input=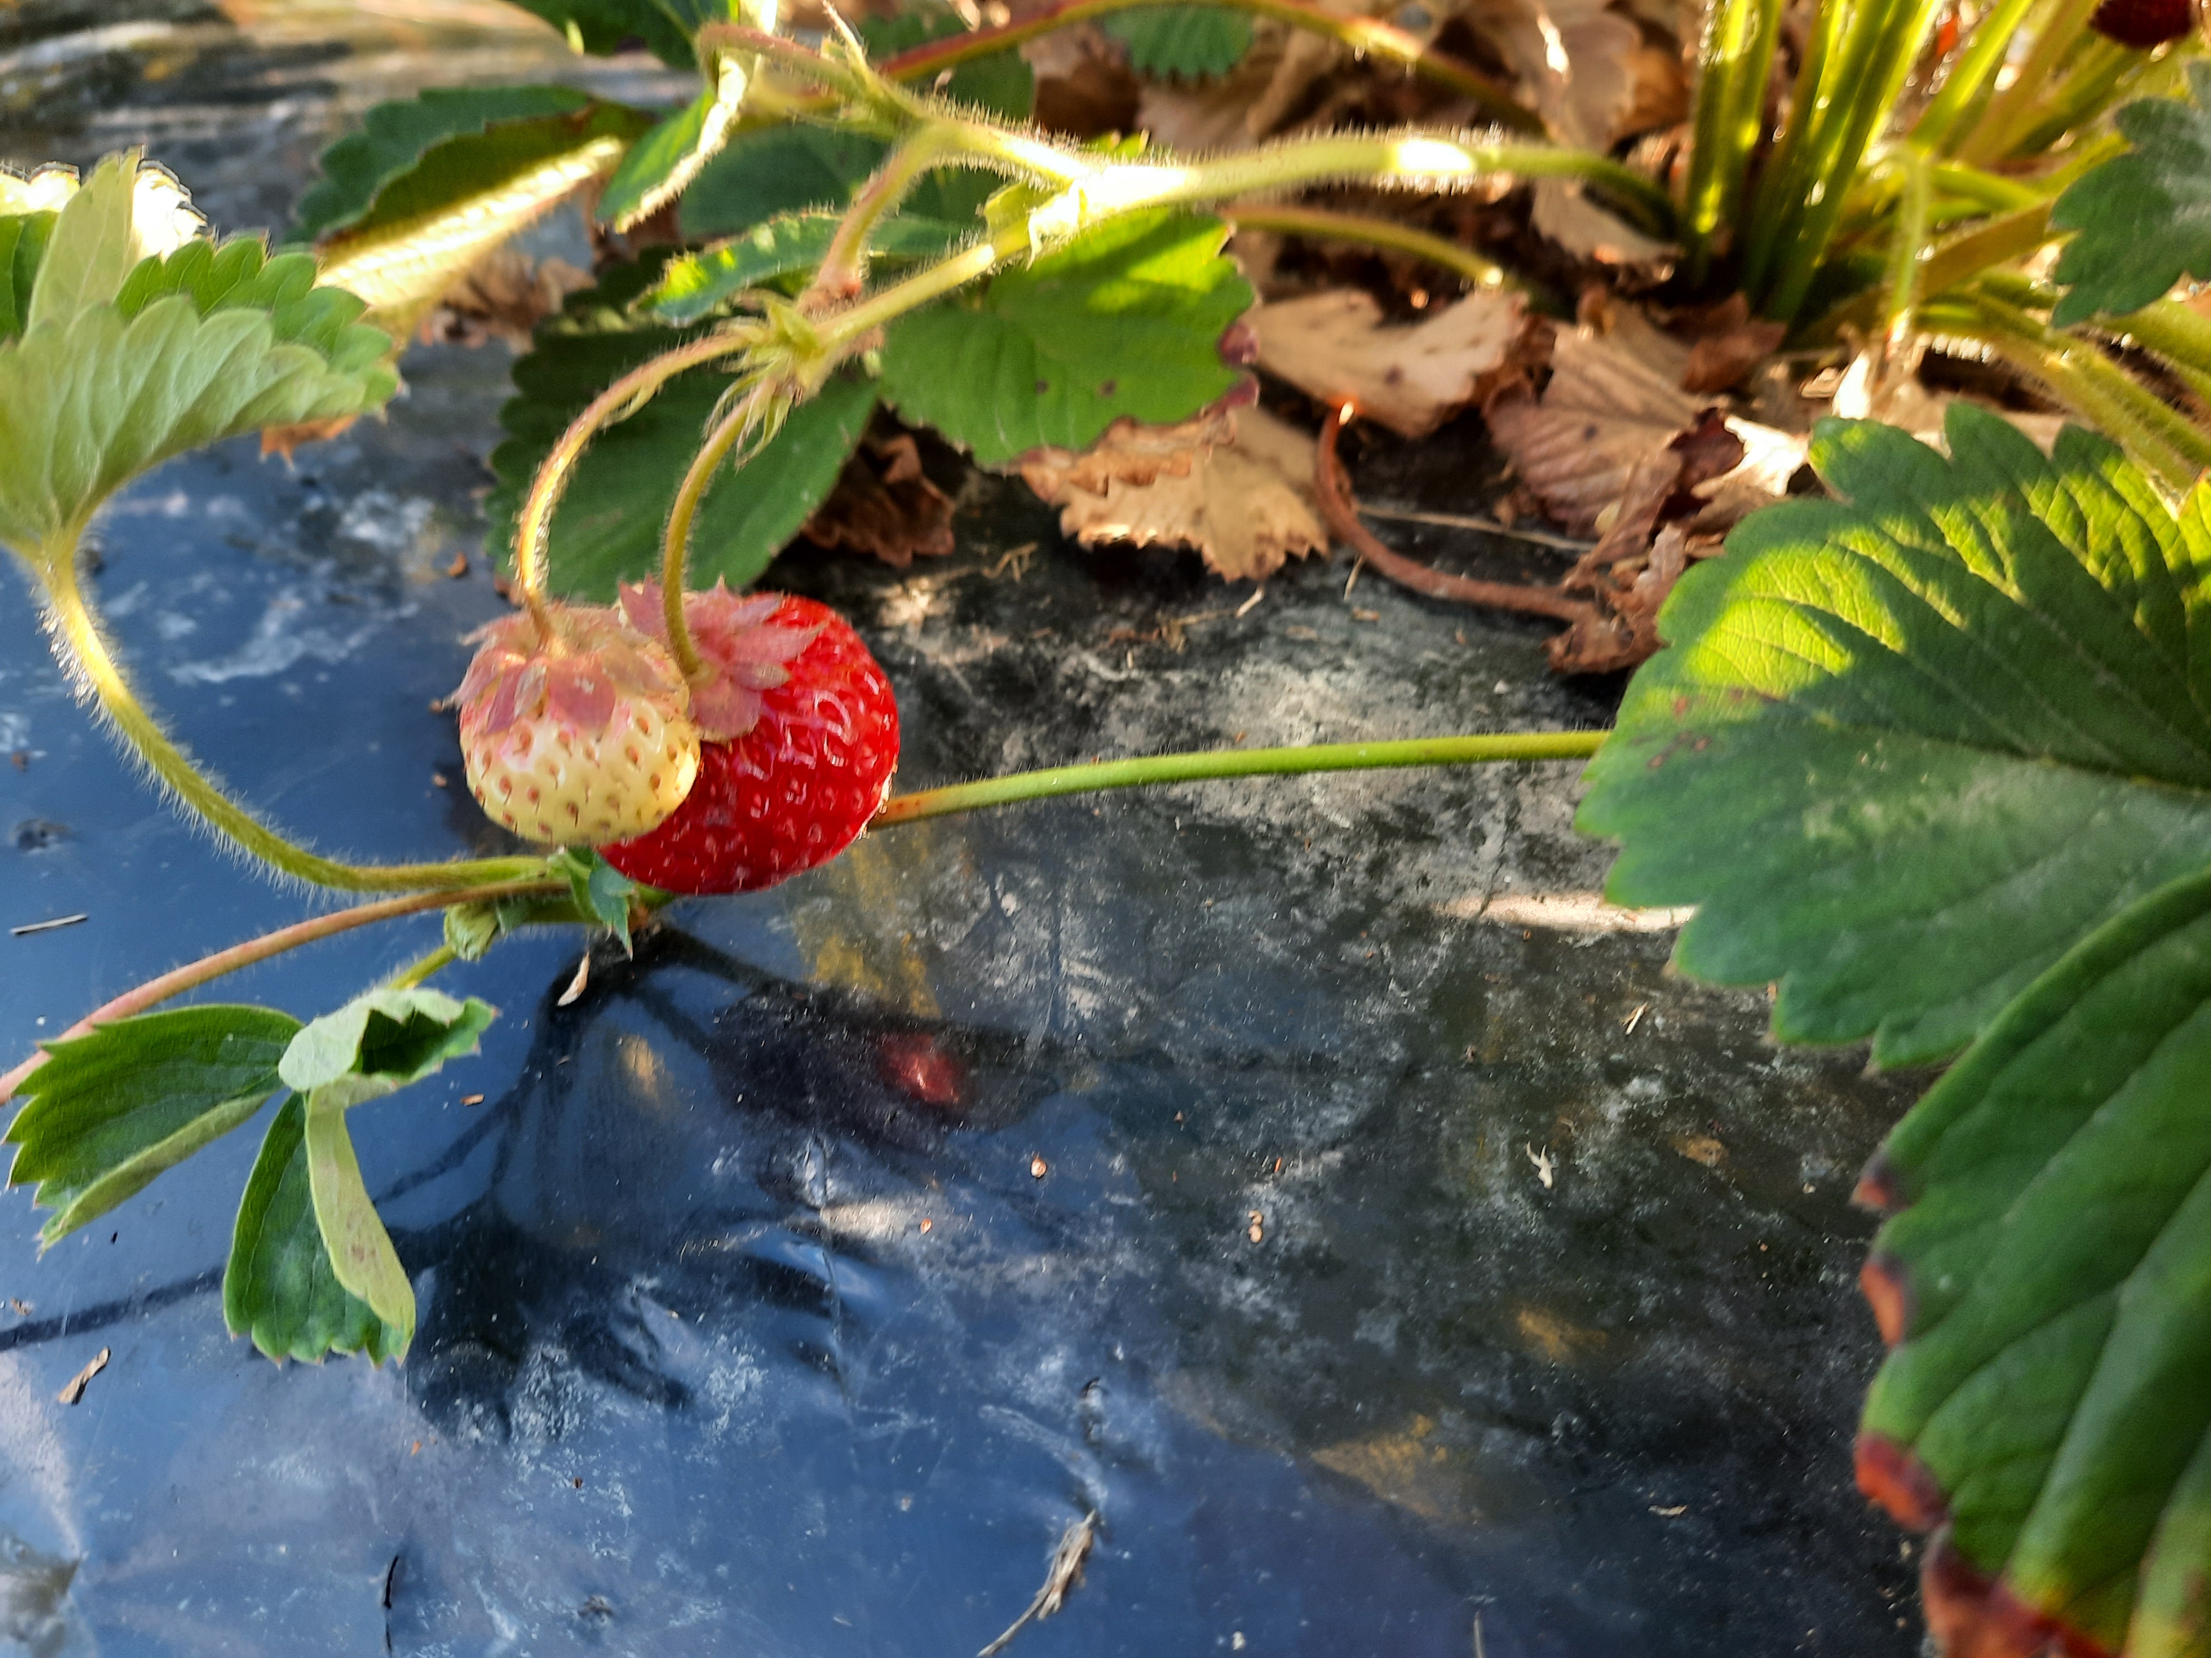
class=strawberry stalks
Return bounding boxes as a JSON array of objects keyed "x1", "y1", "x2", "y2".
[
  {"x1": 499, "y1": 386, "x2": 641, "y2": 678},
  {"x1": 659, "y1": 410, "x2": 752, "y2": 704}
]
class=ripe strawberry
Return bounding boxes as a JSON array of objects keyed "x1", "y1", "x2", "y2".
[{"x1": 592, "y1": 574, "x2": 894, "y2": 876}]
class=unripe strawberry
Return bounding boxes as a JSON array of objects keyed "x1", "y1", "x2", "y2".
[{"x1": 460, "y1": 615, "x2": 710, "y2": 825}]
